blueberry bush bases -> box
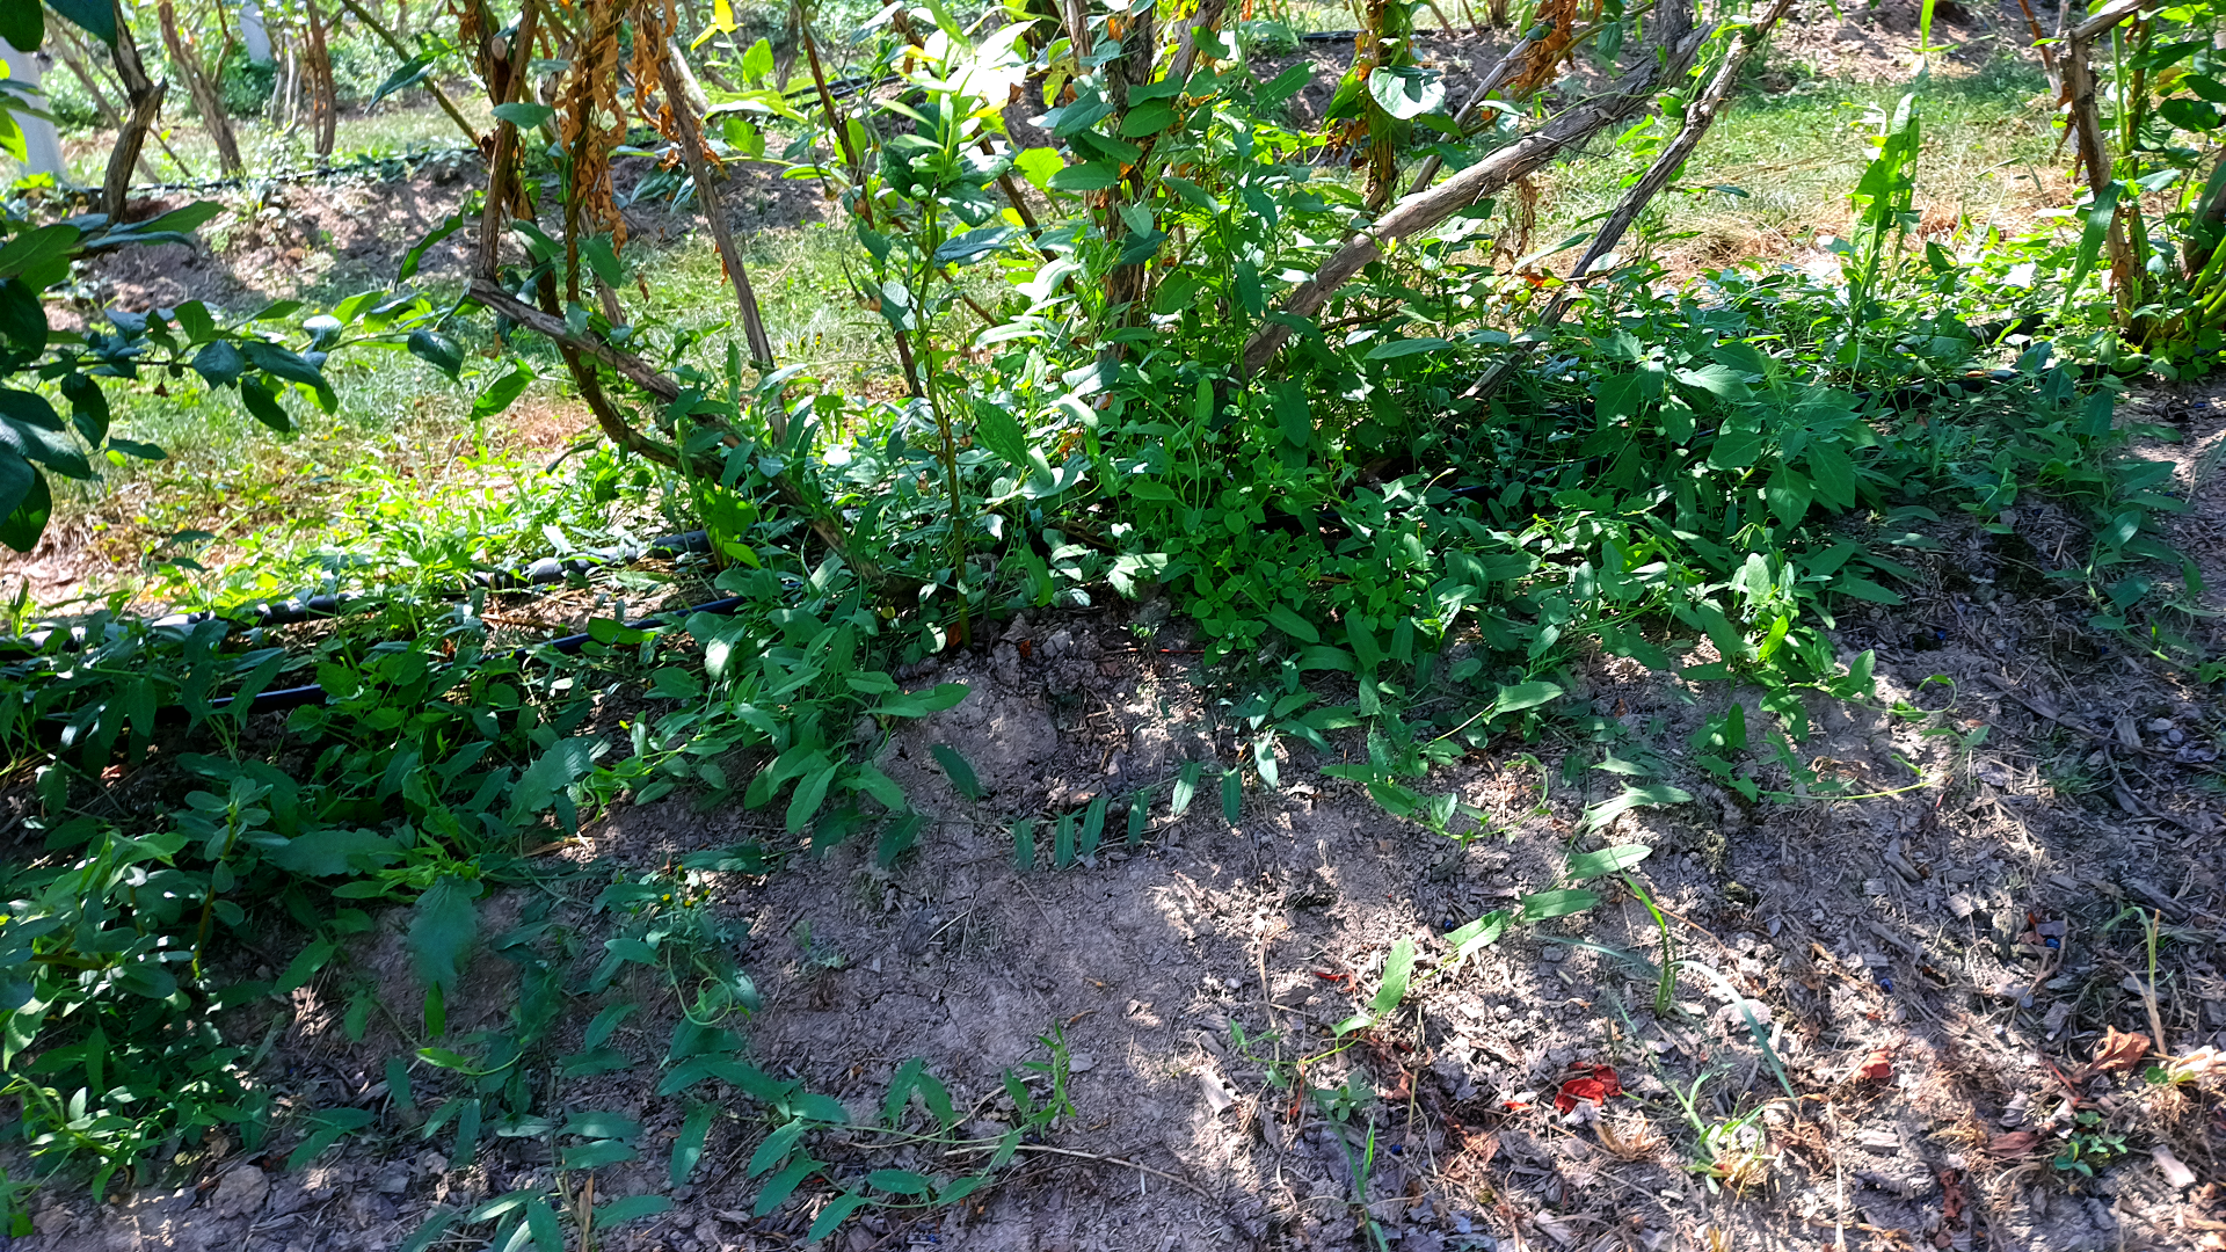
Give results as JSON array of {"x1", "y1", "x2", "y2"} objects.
[
  {"x1": 541, "y1": 167, "x2": 1650, "y2": 735},
  {"x1": 2035, "y1": 115, "x2": 2226, "y2": 443}
]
